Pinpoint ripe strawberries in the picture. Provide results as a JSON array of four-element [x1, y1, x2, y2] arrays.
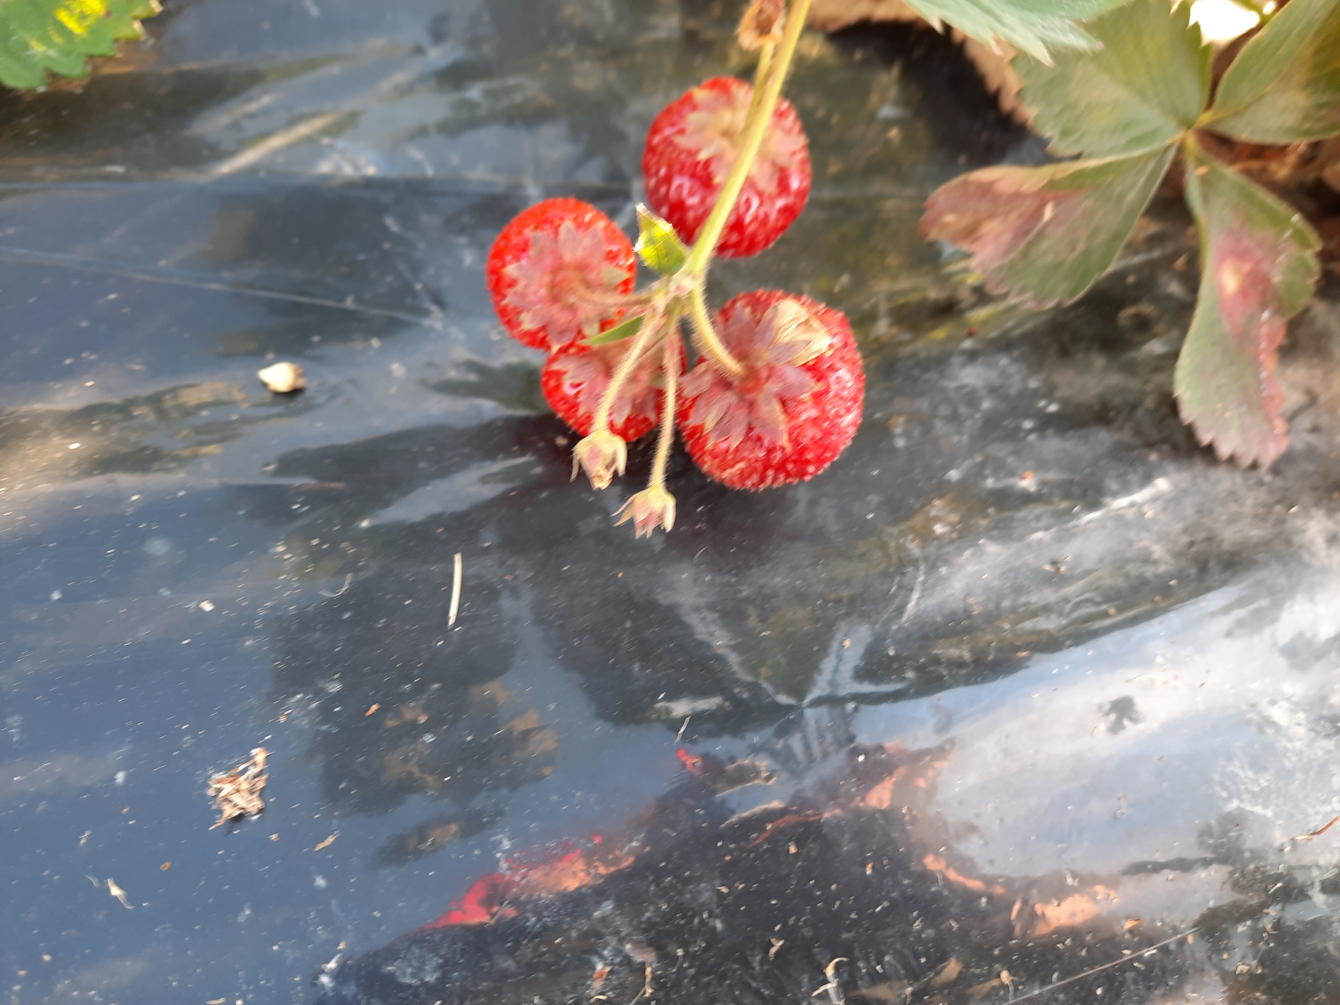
[[528, 293, 686, 459], [700, 290, 851, 483], [655, 86, 826, 252], [477, 205, 623, 327]]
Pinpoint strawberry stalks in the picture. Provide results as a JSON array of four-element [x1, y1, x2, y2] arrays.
[[548, 269, 680, 304], [727, 9, 778, 152], [690, 269, 772, 390]]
